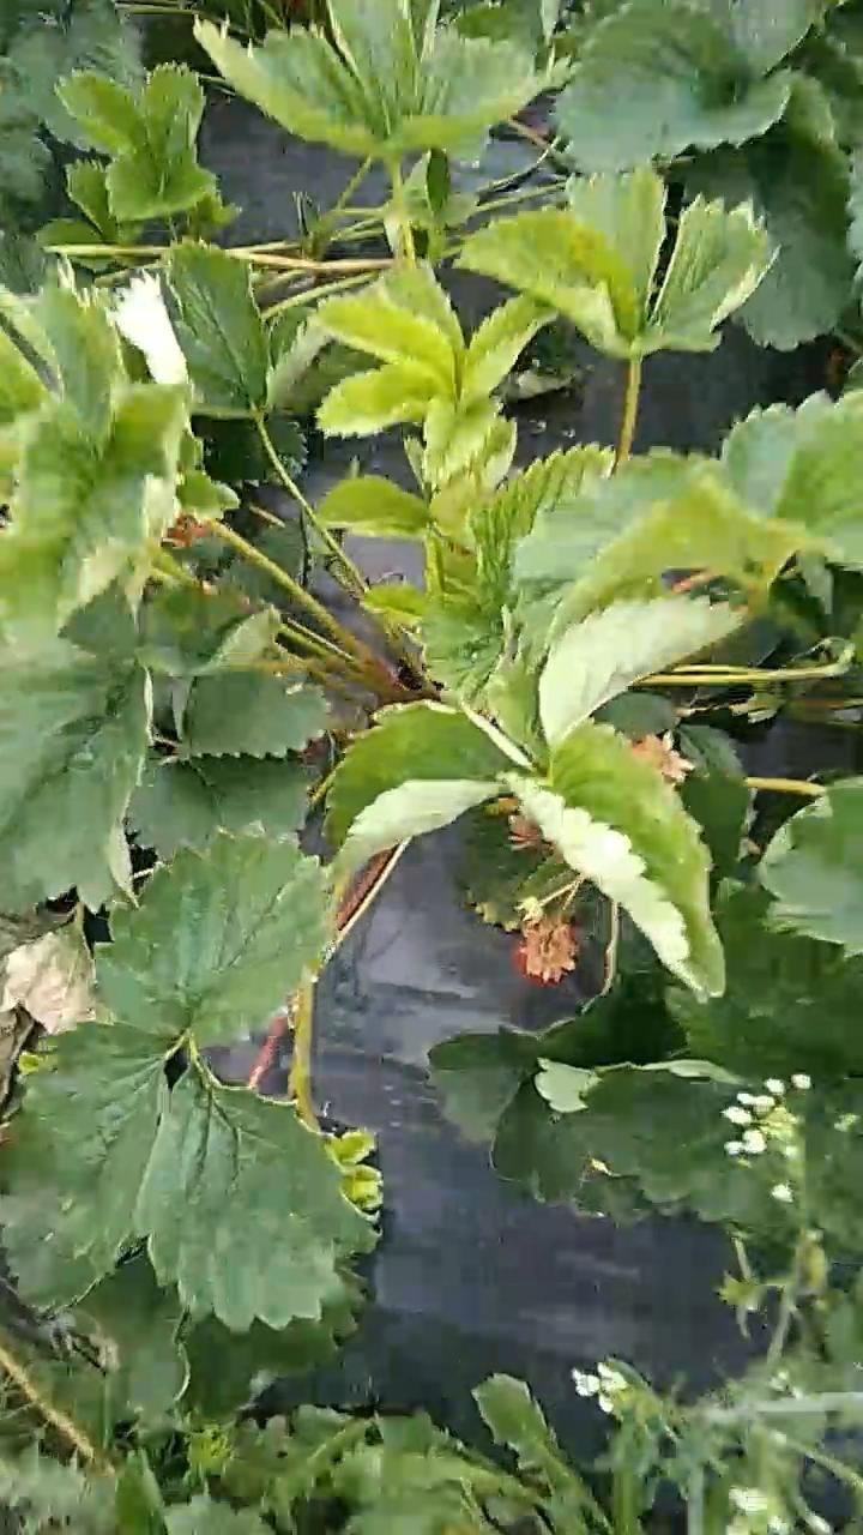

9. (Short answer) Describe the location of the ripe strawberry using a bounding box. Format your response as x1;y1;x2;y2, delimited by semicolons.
512;920;591;994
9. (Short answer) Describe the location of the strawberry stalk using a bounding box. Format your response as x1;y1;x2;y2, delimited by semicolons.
546;891;575;950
